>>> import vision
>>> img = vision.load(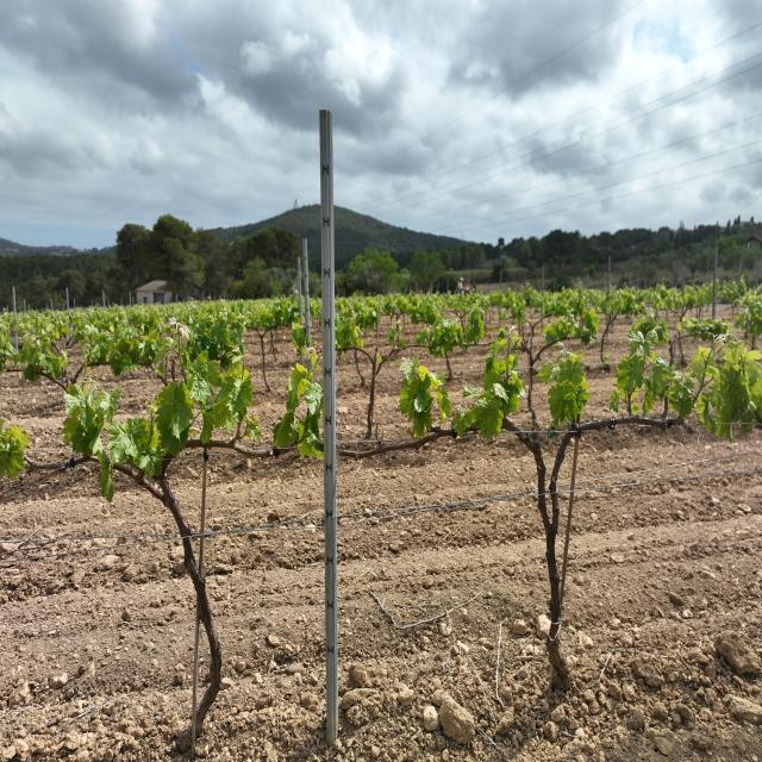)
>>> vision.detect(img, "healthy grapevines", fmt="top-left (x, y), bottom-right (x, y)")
top-left (6, 331), bottom-right (332, 762)
top-left (296, 325), bottom-right (762, 724)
